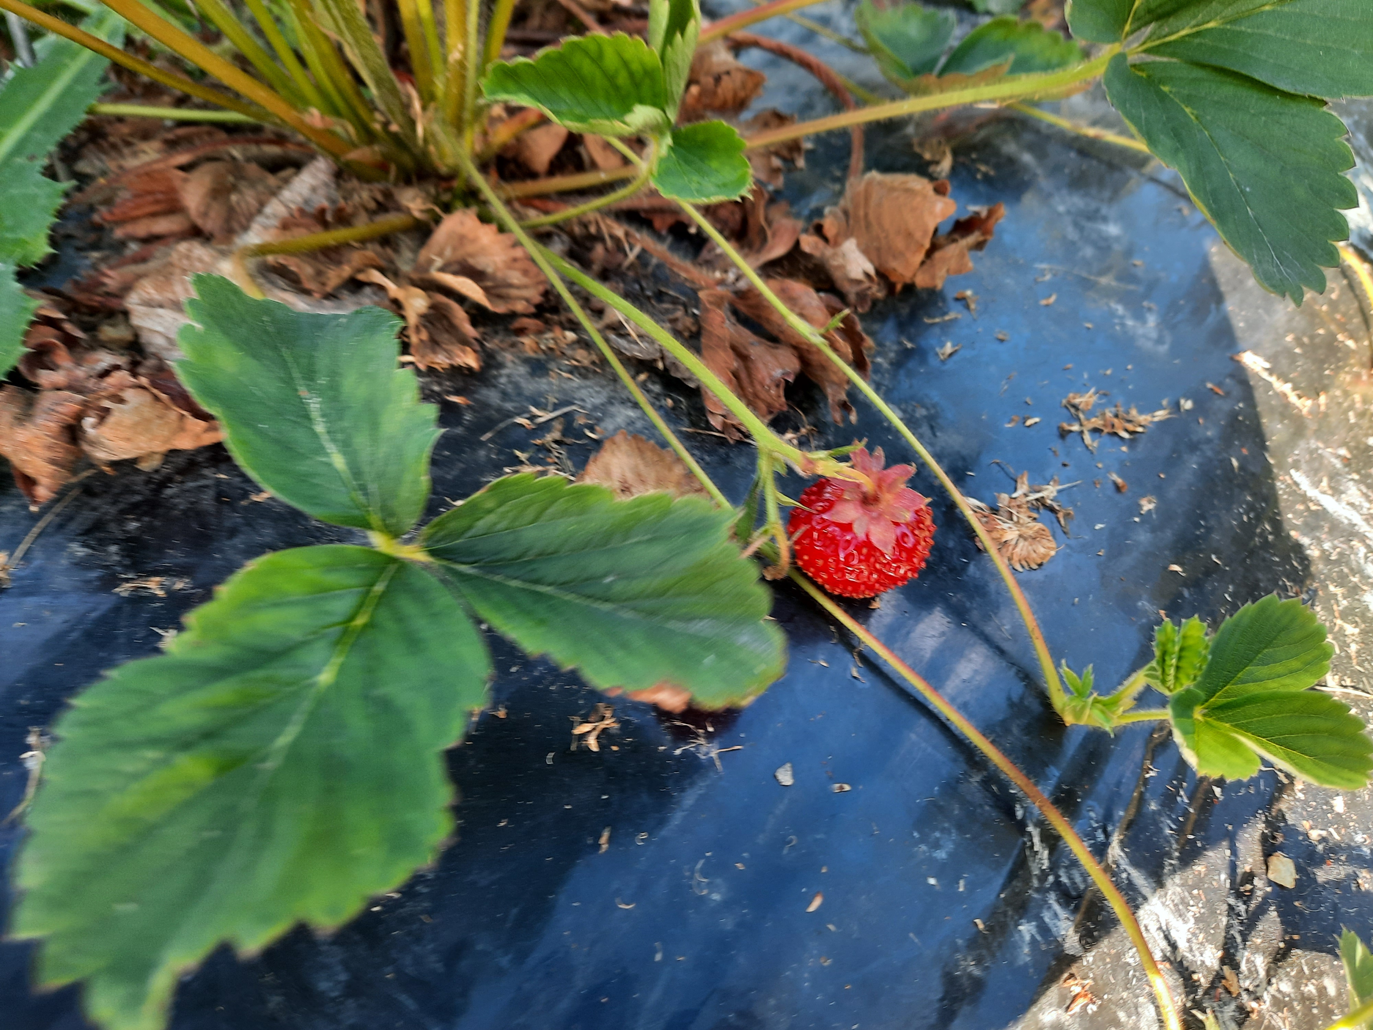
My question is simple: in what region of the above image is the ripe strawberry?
[795,467,948,596]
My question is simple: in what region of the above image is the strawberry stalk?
[793,442,889,520]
